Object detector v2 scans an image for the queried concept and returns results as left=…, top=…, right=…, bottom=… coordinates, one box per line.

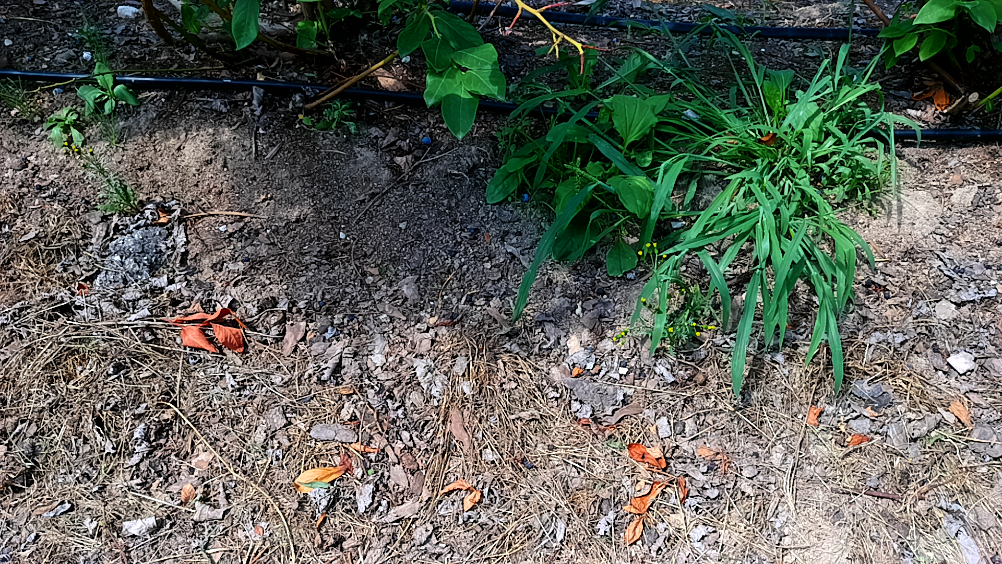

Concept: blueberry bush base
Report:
left=851, top=0, right=1002, bottom=133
